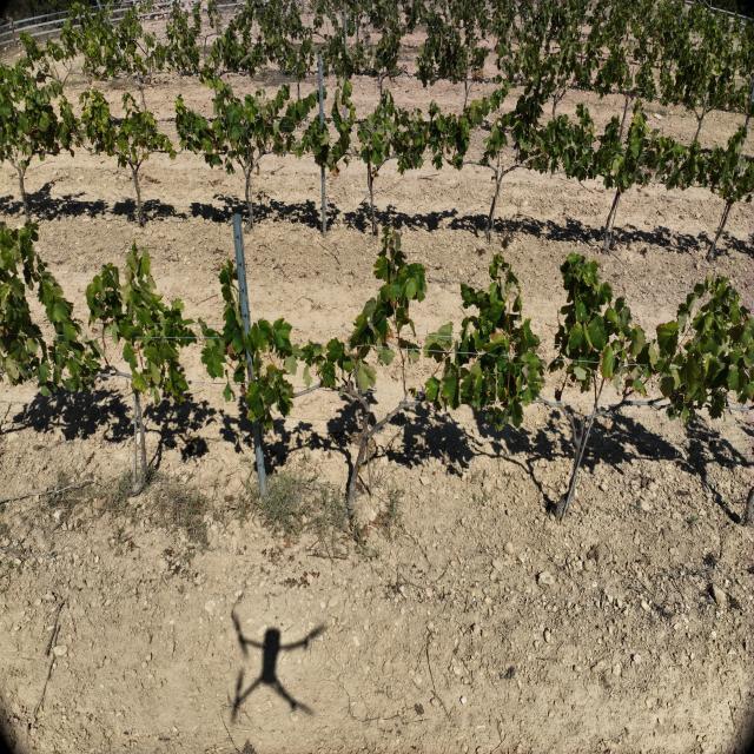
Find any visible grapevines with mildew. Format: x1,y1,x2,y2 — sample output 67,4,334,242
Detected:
0,199,207,497
475,245,754,540
205,229,504,548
